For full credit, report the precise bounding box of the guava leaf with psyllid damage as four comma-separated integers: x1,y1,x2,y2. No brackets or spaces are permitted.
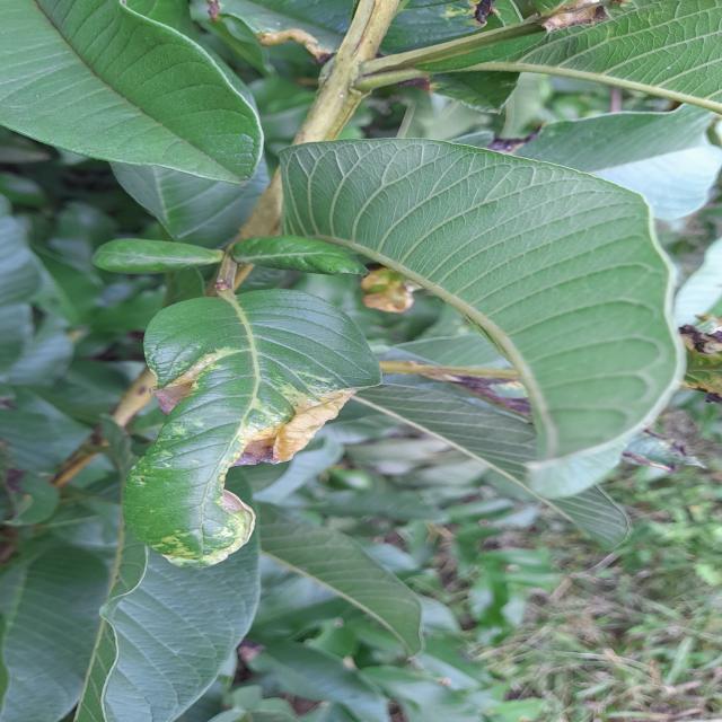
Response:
100,291,395,580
